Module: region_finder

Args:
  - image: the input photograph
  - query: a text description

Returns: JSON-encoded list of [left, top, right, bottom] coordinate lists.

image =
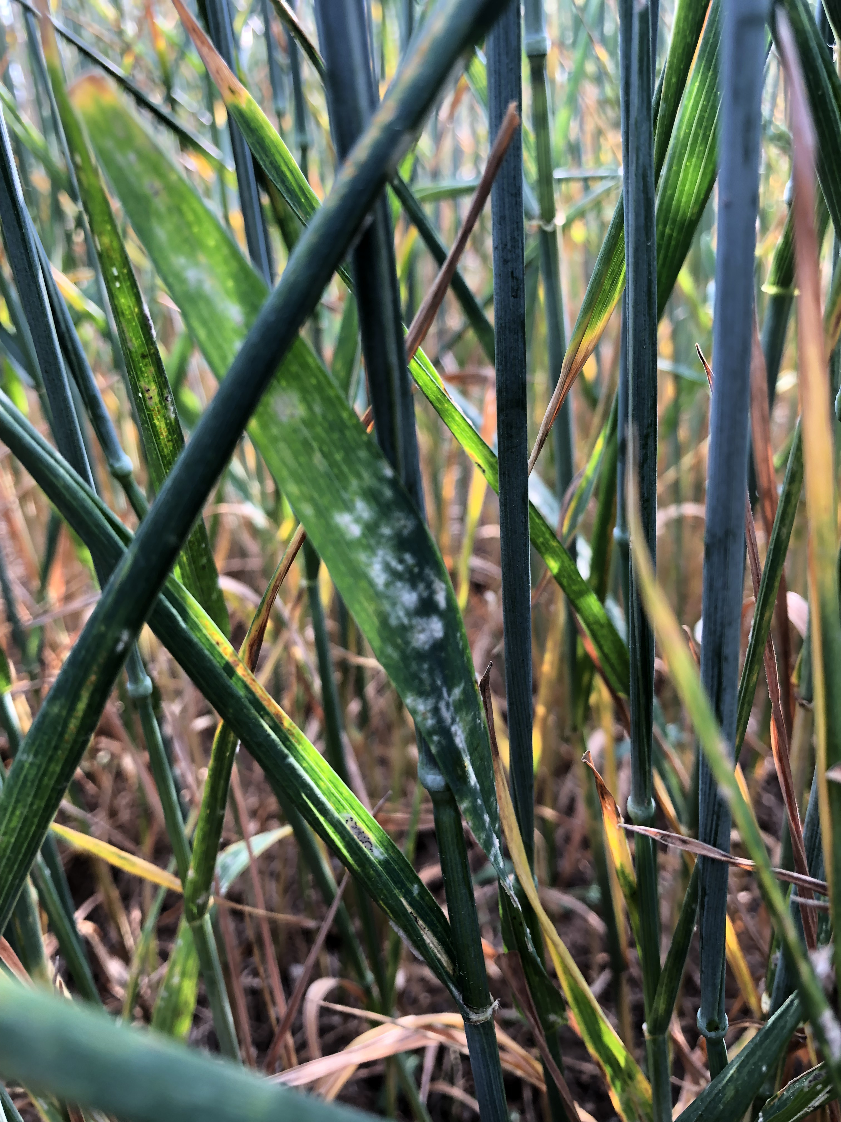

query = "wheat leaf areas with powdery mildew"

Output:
[[63, 149, 196, 478], [321, 783, 415, 913], [273, 367, 531, 868]]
